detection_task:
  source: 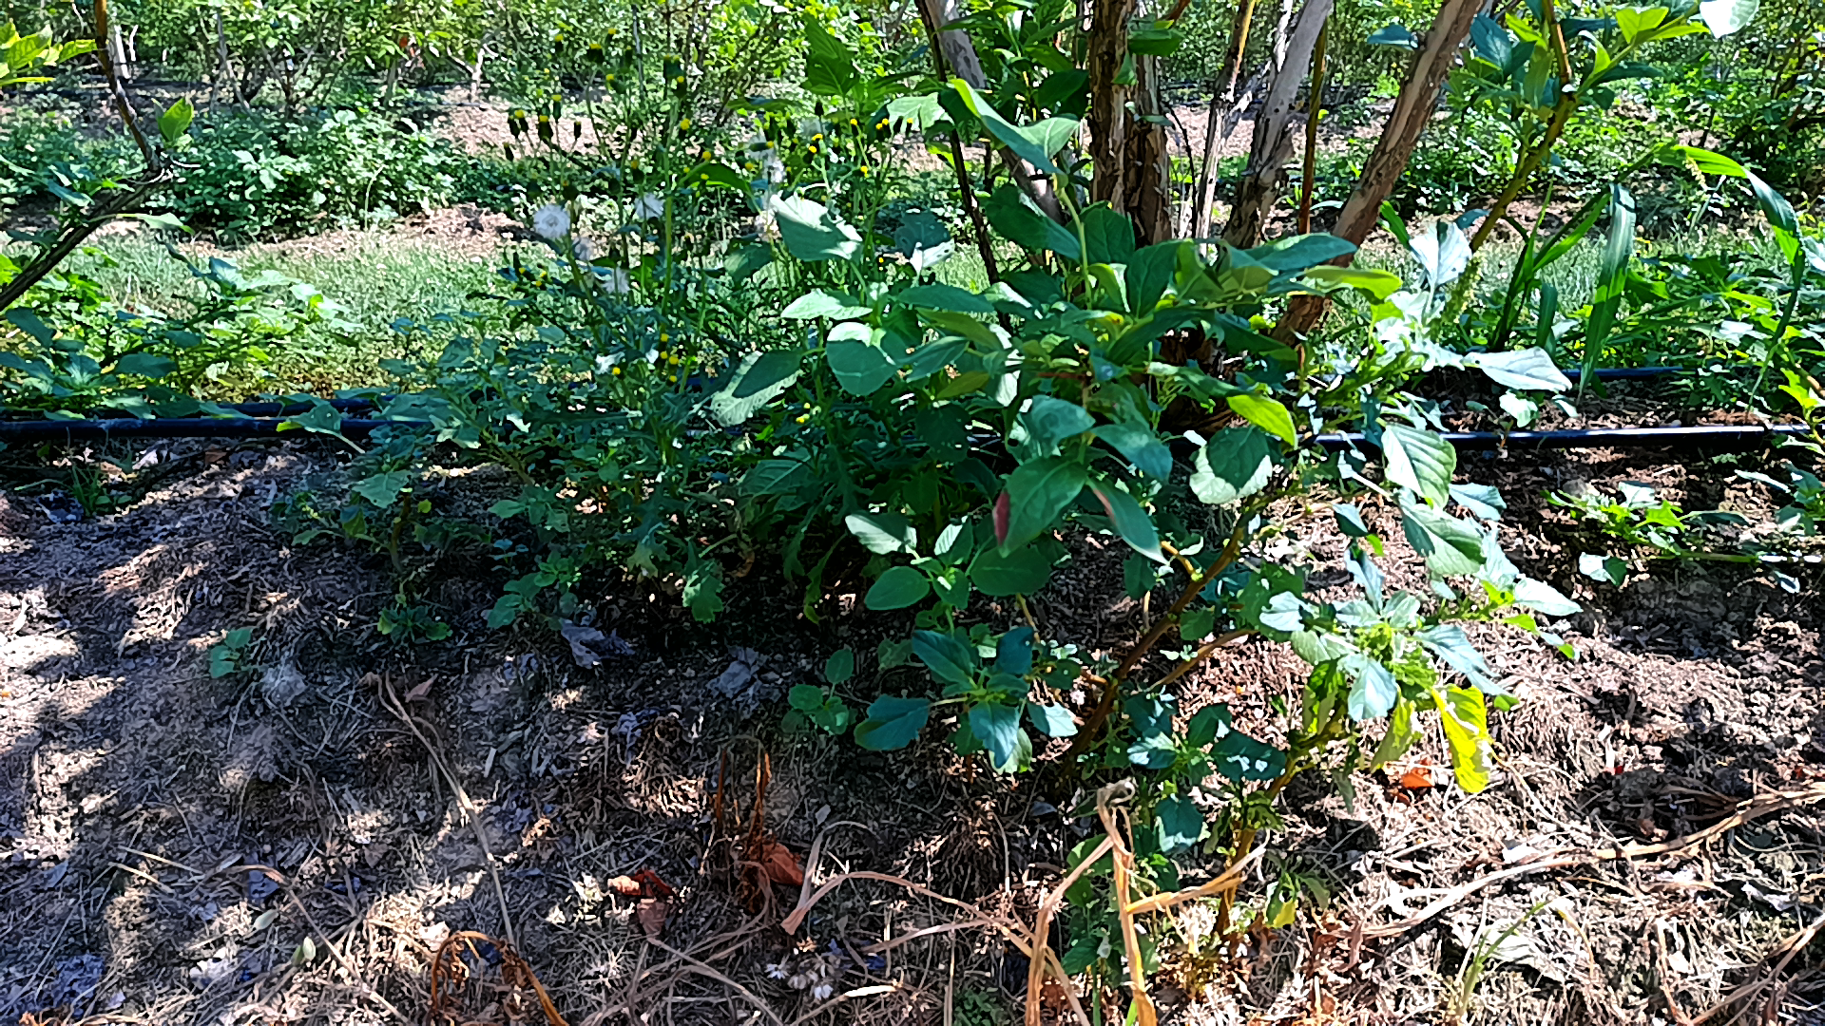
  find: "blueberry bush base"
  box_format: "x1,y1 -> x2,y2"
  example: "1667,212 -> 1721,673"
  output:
961,138 -> 1383,526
